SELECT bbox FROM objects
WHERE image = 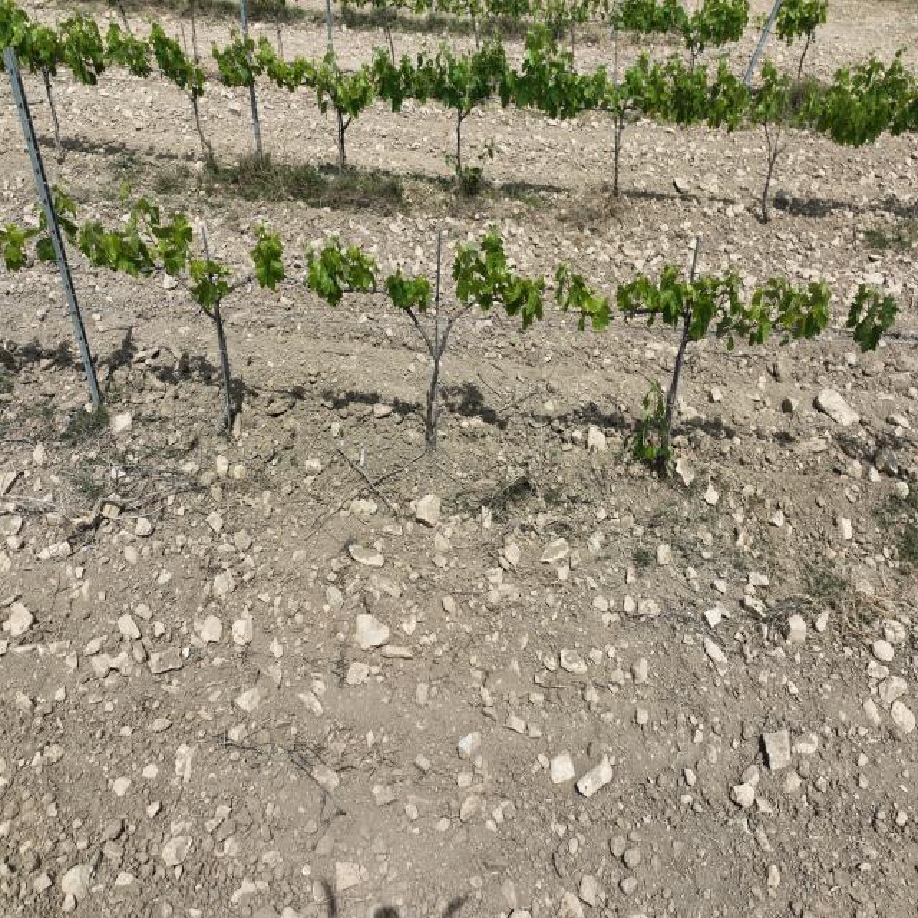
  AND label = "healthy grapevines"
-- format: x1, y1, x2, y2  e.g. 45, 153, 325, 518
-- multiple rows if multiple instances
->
552, 240, 902, 501
304, 231, 549, 460
0, 204, 311, 456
